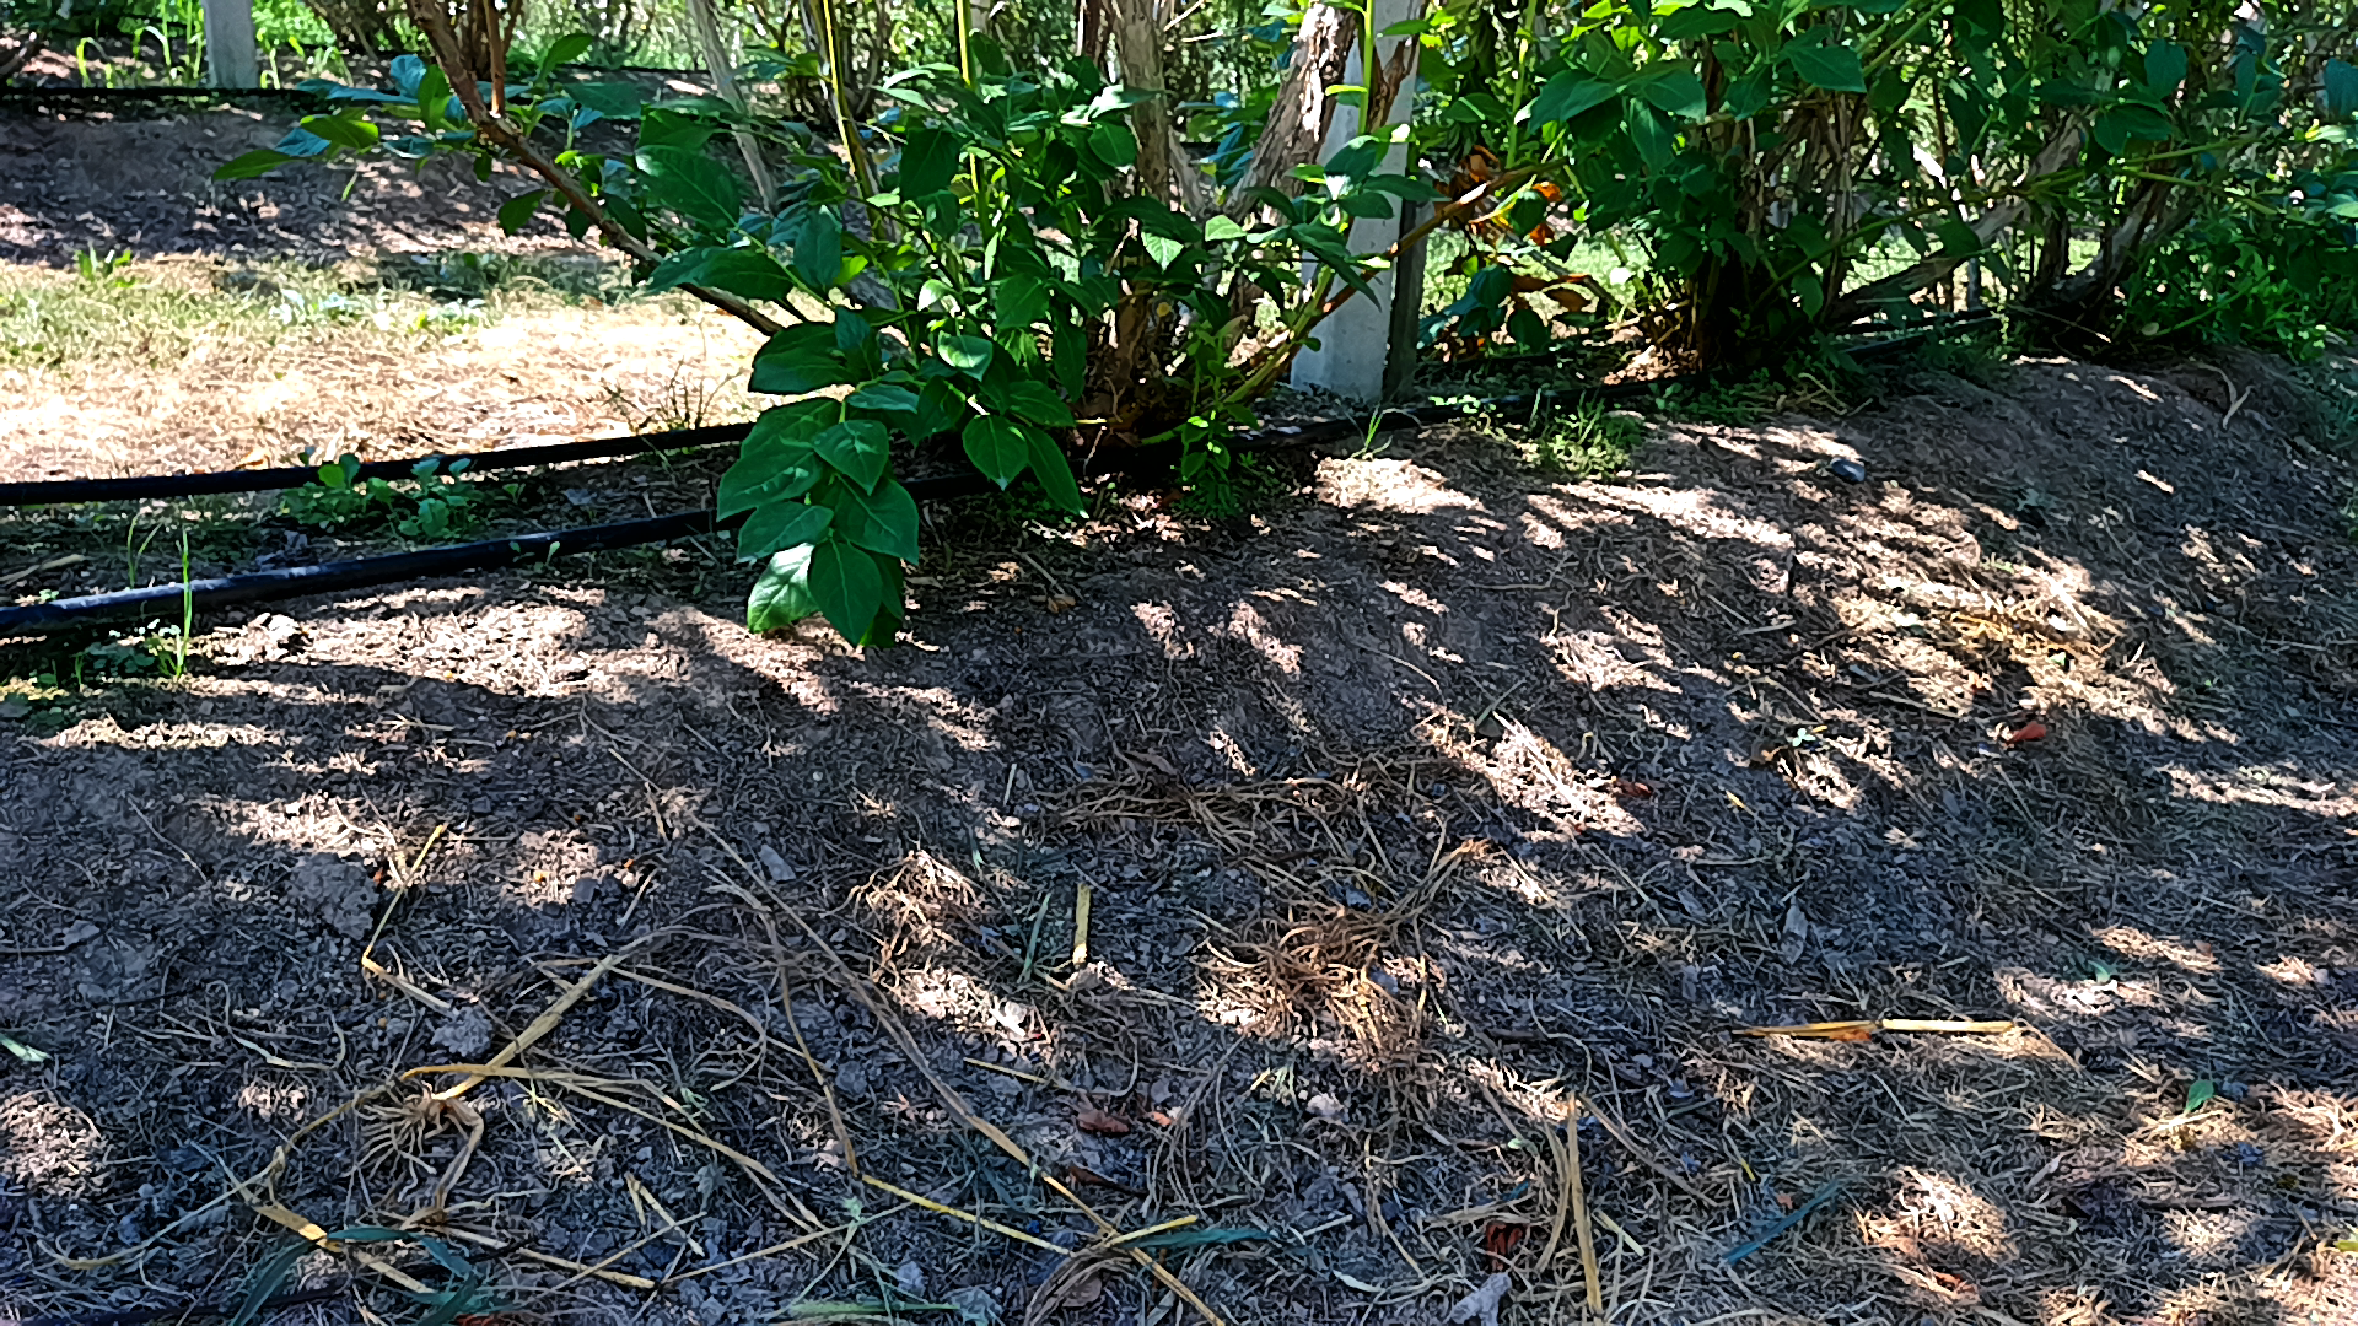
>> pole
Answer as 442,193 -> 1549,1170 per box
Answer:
1276,0 -> 1434,417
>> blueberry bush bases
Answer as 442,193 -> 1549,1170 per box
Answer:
723,102 -> 1347,484
1971,15 -> 2239,369
1579,46 -> 2012,447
